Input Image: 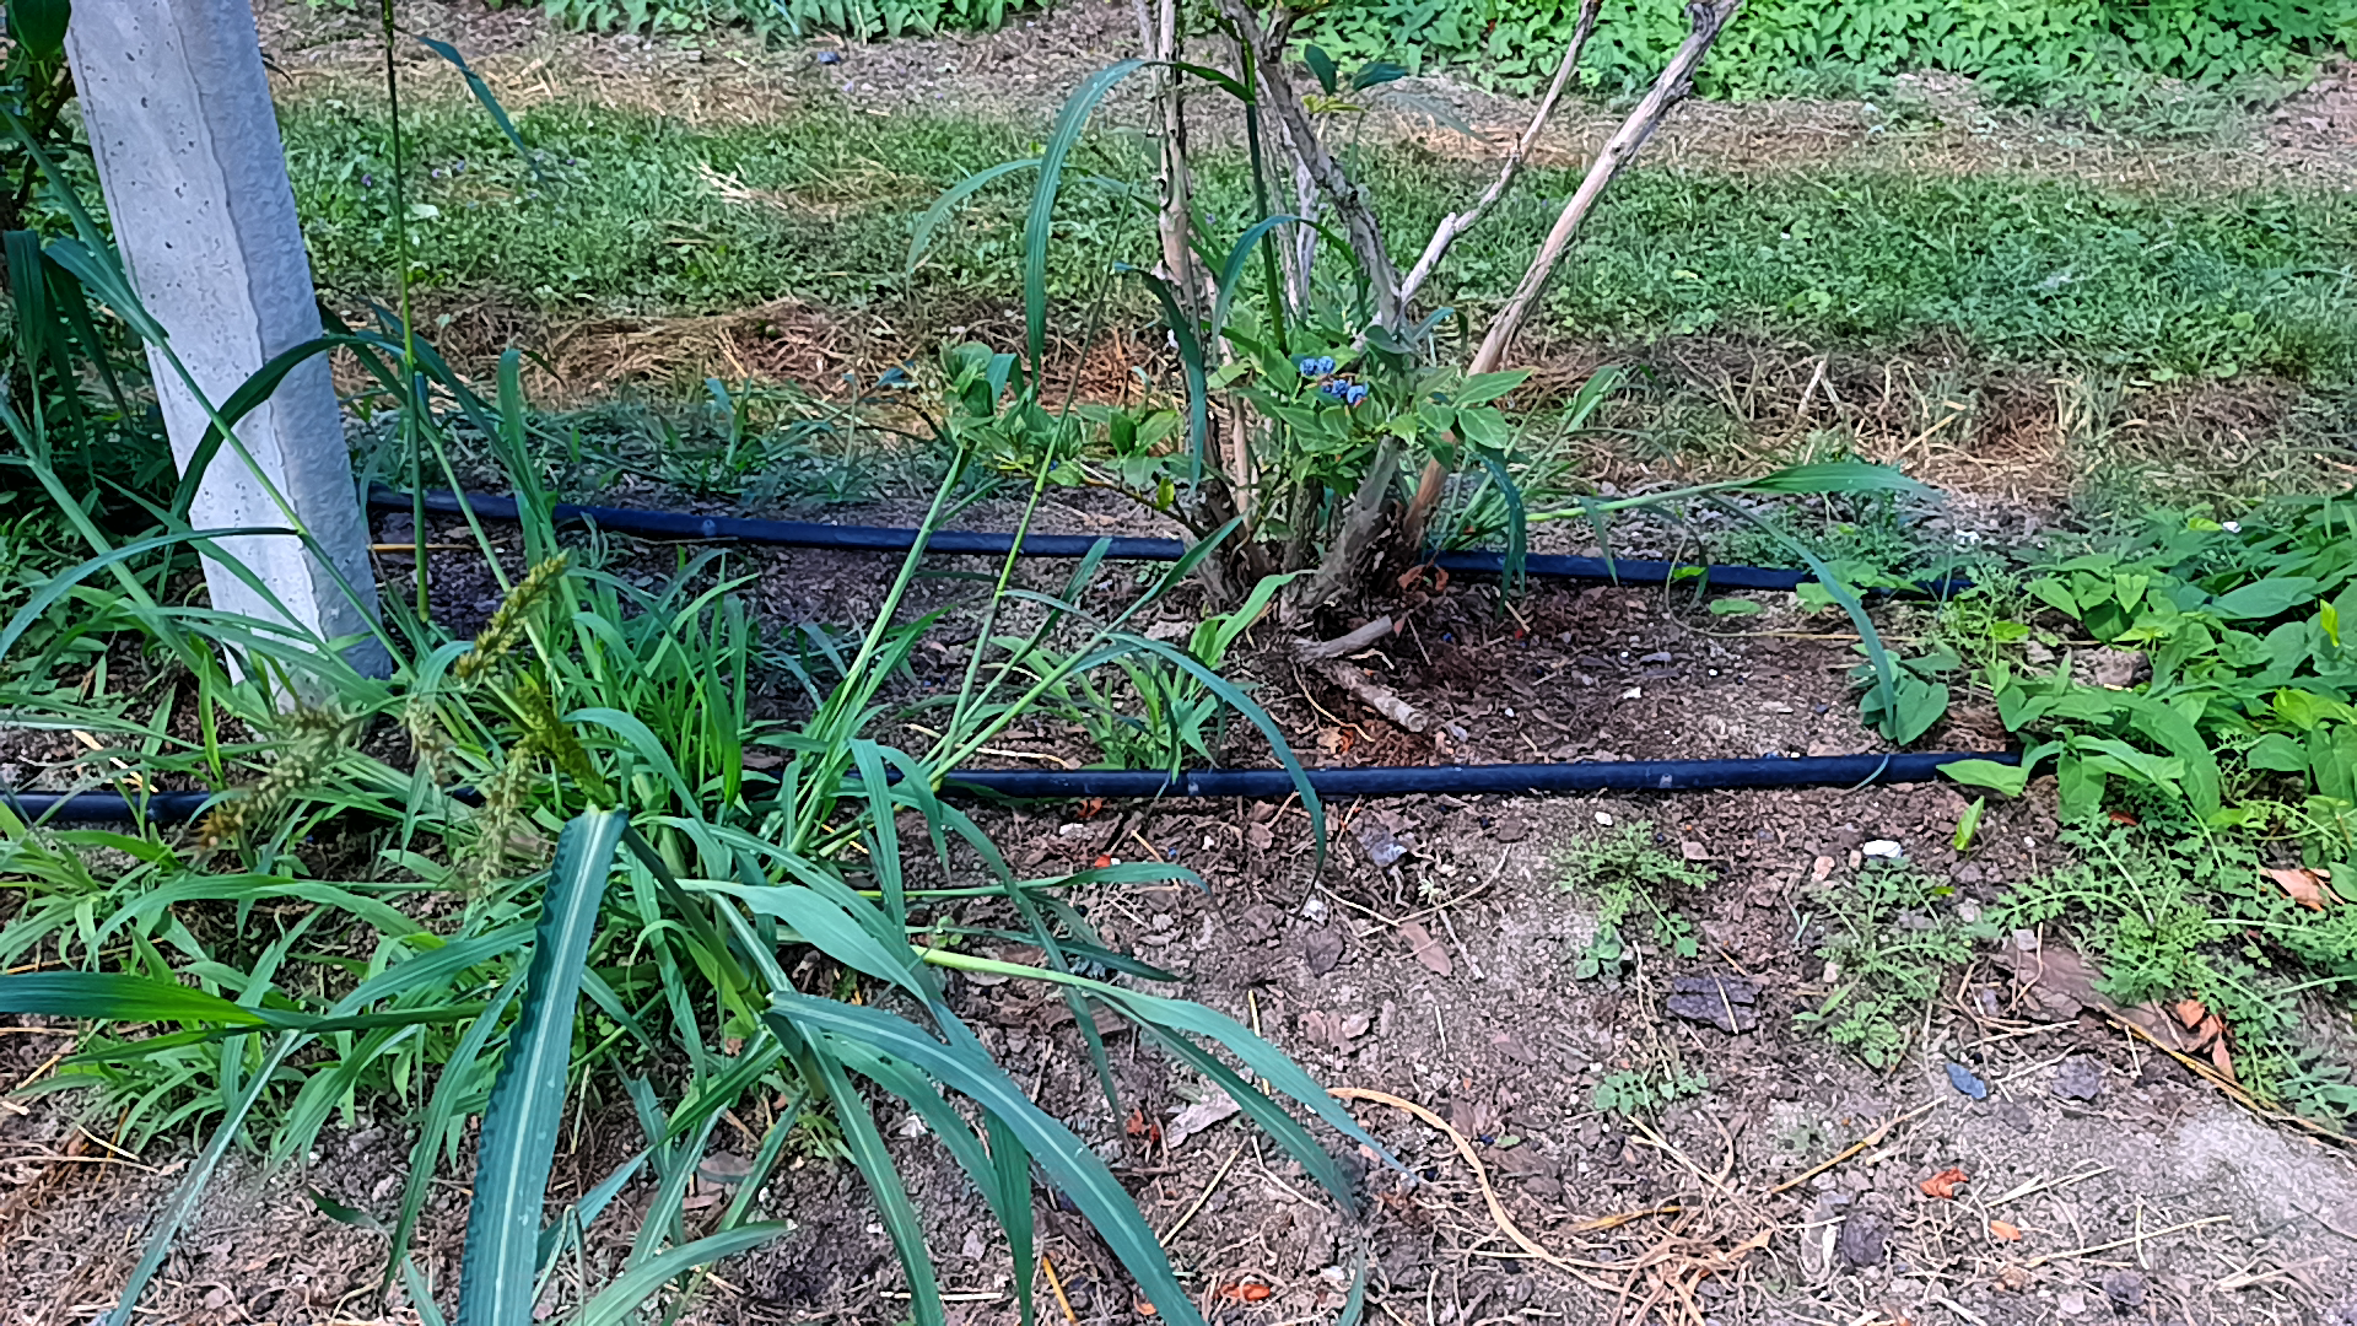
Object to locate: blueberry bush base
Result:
[1069,270,1579,765]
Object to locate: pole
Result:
[83,0,405,733]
